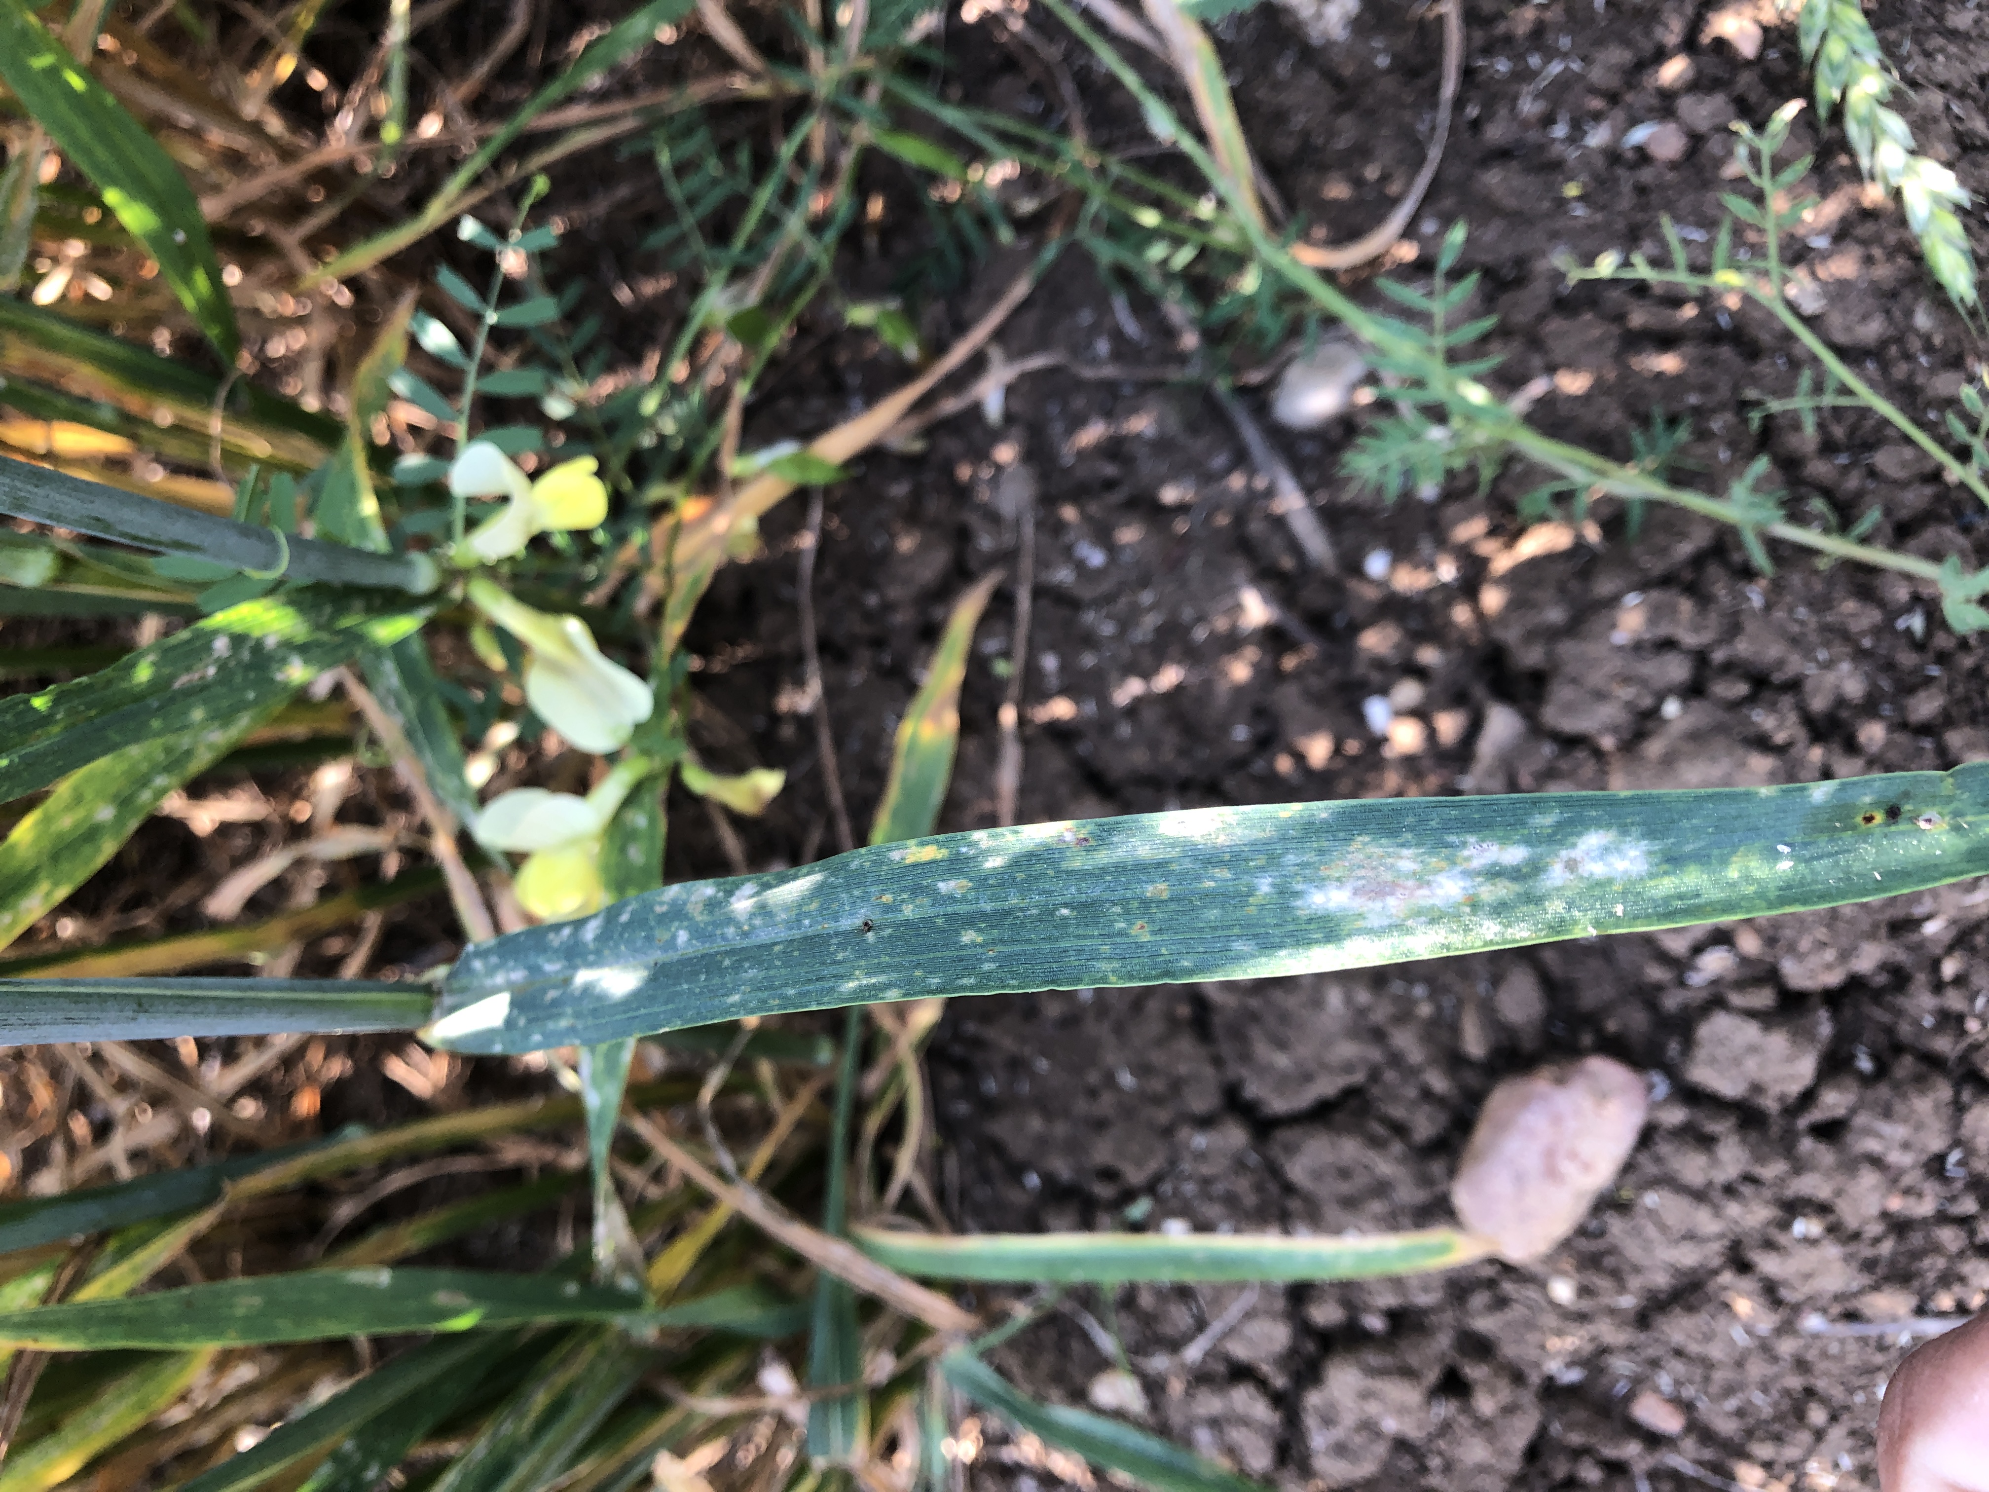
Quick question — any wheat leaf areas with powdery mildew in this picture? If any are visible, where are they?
[88,585,341,768]
[308,1251,489,1325]
[440,752,1977,1059]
